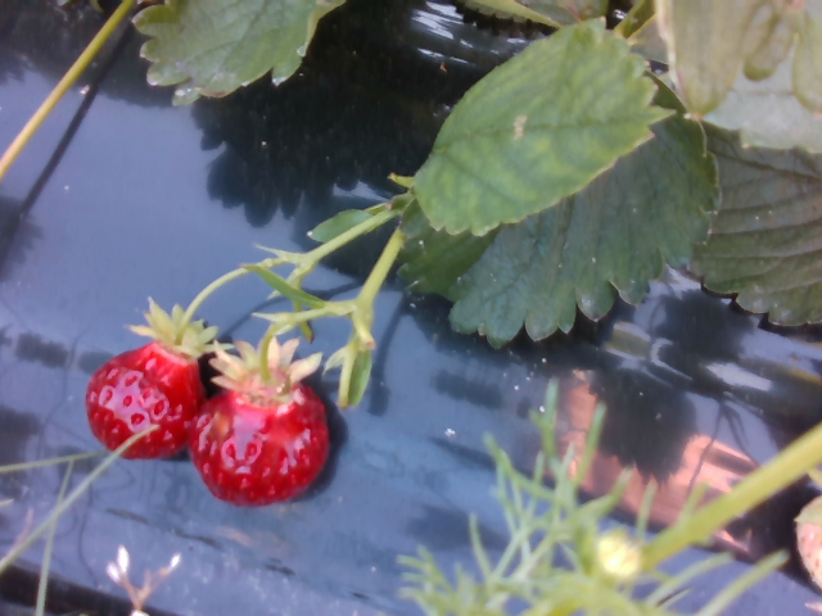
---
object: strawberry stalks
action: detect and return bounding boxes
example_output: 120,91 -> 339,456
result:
148,260 -> 259,378
255,296 -> 318,421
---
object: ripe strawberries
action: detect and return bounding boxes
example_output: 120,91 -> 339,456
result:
83,338 -> 205,461
198,376 -> 346,508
